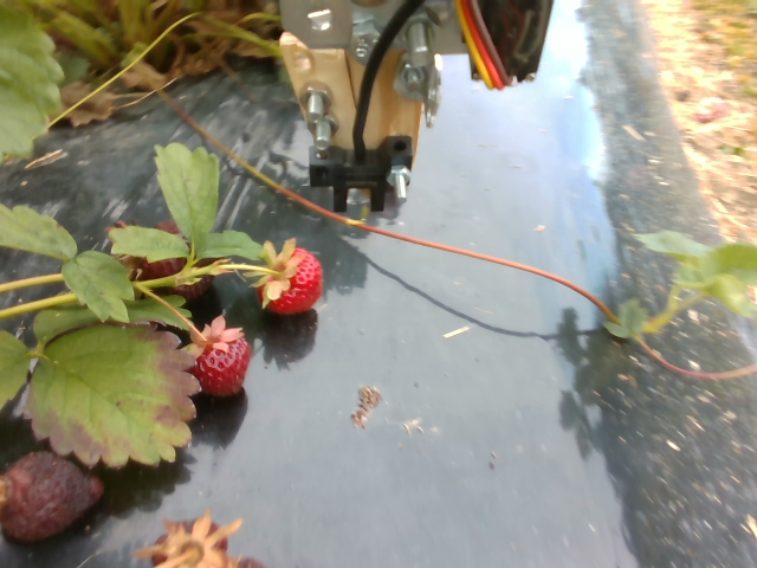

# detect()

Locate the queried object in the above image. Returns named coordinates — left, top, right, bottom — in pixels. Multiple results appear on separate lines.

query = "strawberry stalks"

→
left=140, top=282, right=213, bottom=348
left=201, top=255, right=294, bottom=286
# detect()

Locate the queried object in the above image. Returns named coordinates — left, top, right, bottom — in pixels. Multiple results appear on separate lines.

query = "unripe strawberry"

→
left=3, top=443, right=113, bottom=545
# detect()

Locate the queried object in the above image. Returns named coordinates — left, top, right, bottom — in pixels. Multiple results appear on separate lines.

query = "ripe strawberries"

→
left=198, top=326, right=254, bottom=391
left=257, top=246, right=328, bottom=313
